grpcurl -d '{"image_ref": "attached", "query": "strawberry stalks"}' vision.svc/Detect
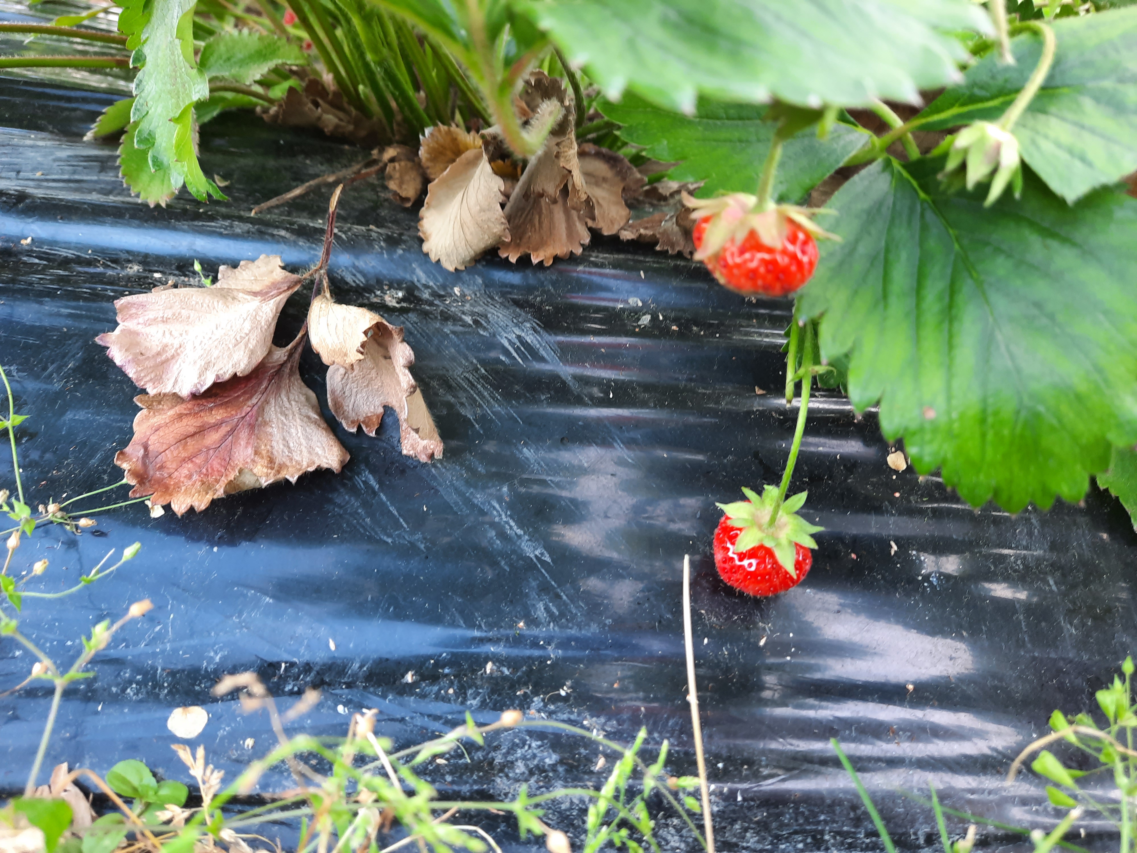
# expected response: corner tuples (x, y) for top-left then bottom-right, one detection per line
(753, 119), (795, 223)
(752, 377), (816, 539)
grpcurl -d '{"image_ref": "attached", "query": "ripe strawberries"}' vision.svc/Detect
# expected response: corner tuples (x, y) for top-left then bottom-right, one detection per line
(717, 502), (823, 597)
(694, 193), (820, 287)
